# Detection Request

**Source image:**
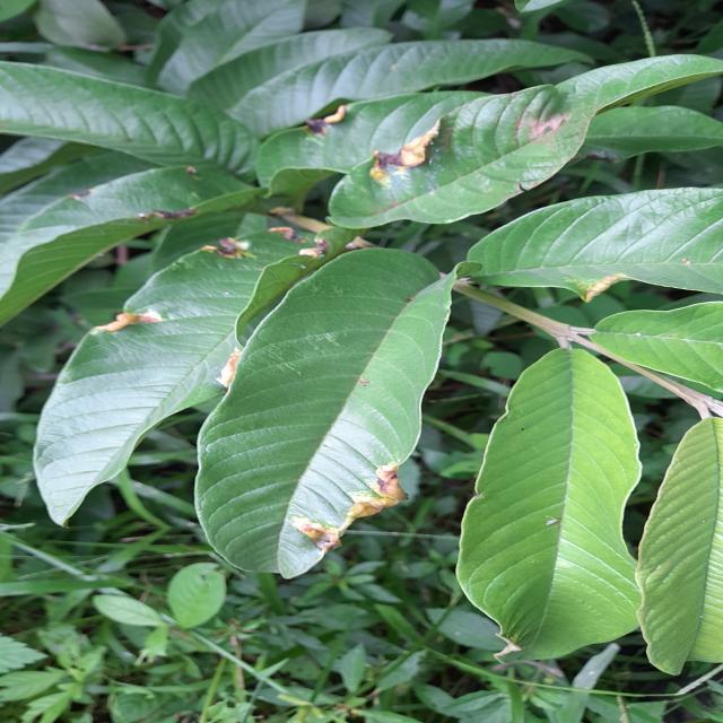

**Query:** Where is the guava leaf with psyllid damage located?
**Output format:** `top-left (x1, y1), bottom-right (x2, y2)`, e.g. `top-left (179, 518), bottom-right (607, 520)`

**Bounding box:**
top-left (167, 241), bottom-right (477, 598)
